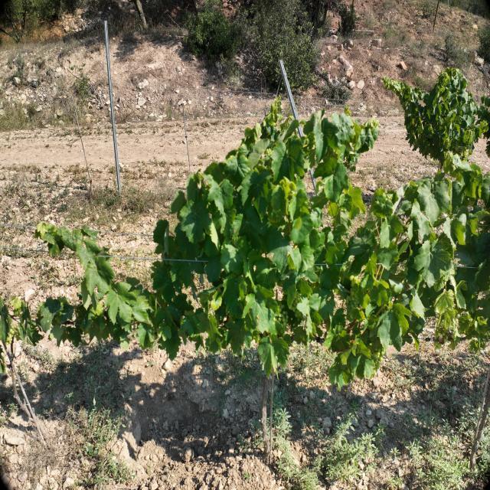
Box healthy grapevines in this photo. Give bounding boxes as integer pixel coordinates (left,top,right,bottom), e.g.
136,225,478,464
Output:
108,107,400,474
399,158,490,479
0,292,114,443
